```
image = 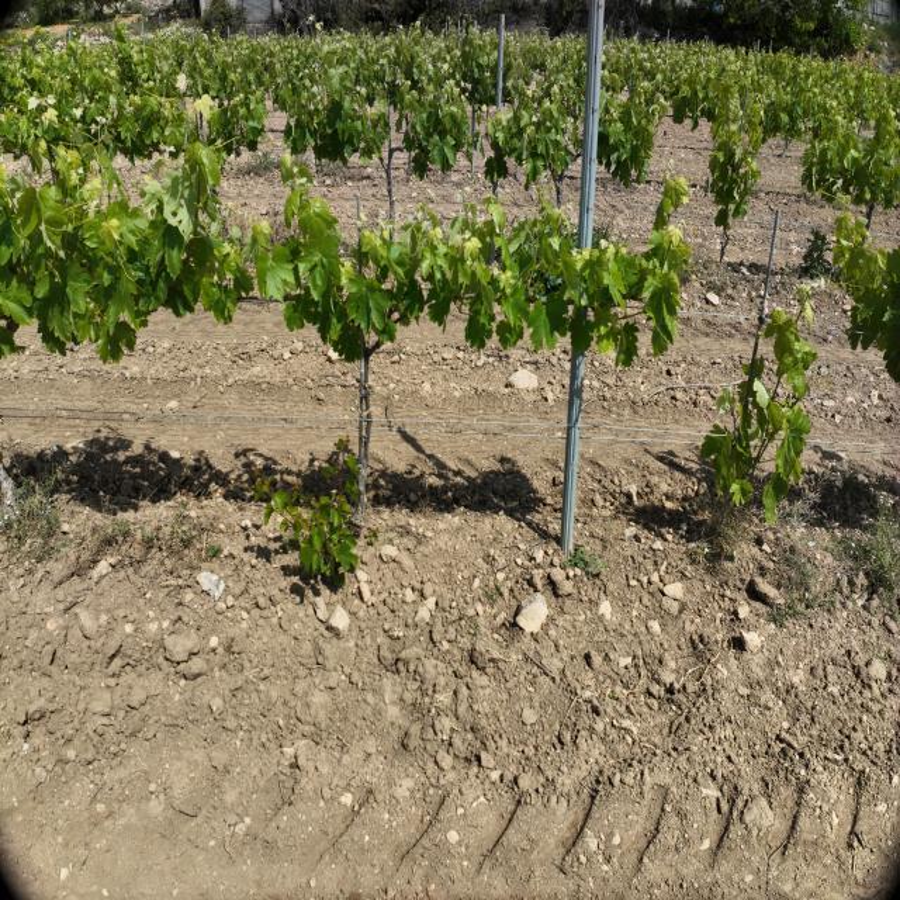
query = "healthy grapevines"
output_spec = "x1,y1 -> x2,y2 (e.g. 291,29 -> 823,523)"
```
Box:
228,171 -> 692,532
692,278 -> 832,541
0,157 -> 232,488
